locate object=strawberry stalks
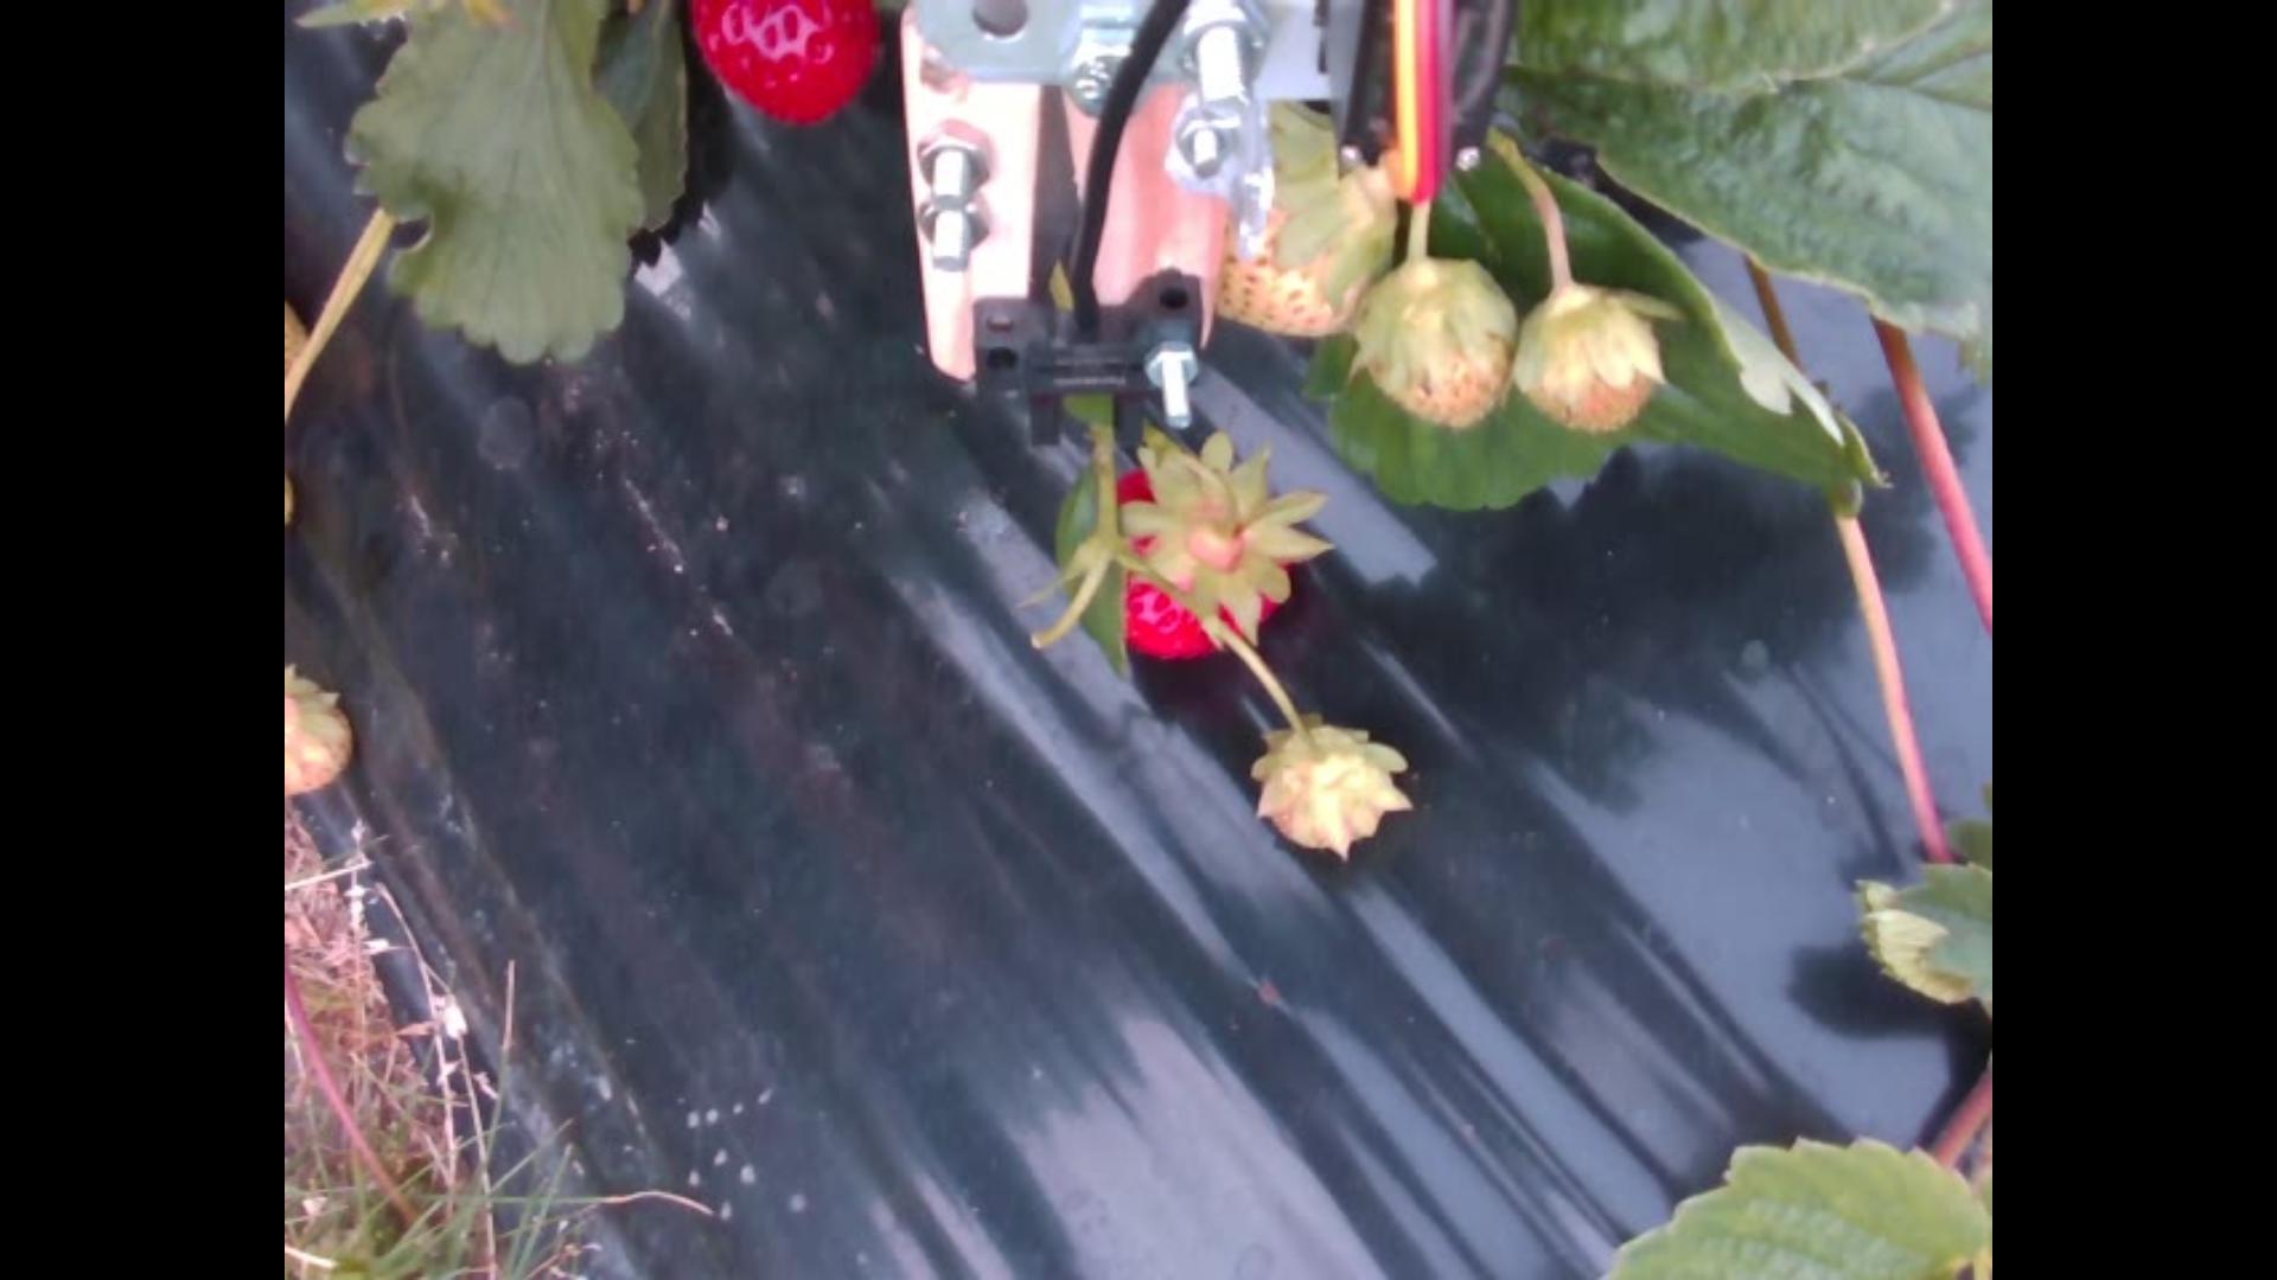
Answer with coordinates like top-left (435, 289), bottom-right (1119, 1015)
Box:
top-left (1484, 146), bottom-right (1596, 302)
top-left (1160, 606), bottom-right (1337, 778)
top-left (1145, 425), bottom-right (1254, 553)
top-left (1395, 171), bottom-right (1466, 284)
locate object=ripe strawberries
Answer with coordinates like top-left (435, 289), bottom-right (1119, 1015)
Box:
top-left (684, 0), bottom-right (905, 136)
top-left (1061, 453), bottom-right (1290, 670)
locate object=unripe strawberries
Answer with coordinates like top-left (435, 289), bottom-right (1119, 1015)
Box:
top-left (1526, 279), bottom-right (1682, 442)
top-left (1207, 101), bottom-right (1379, 333)
top-left (1249, 727), bottom-right (1406, 860)
top-left (1358, 251), bottom-right (1512, 429)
